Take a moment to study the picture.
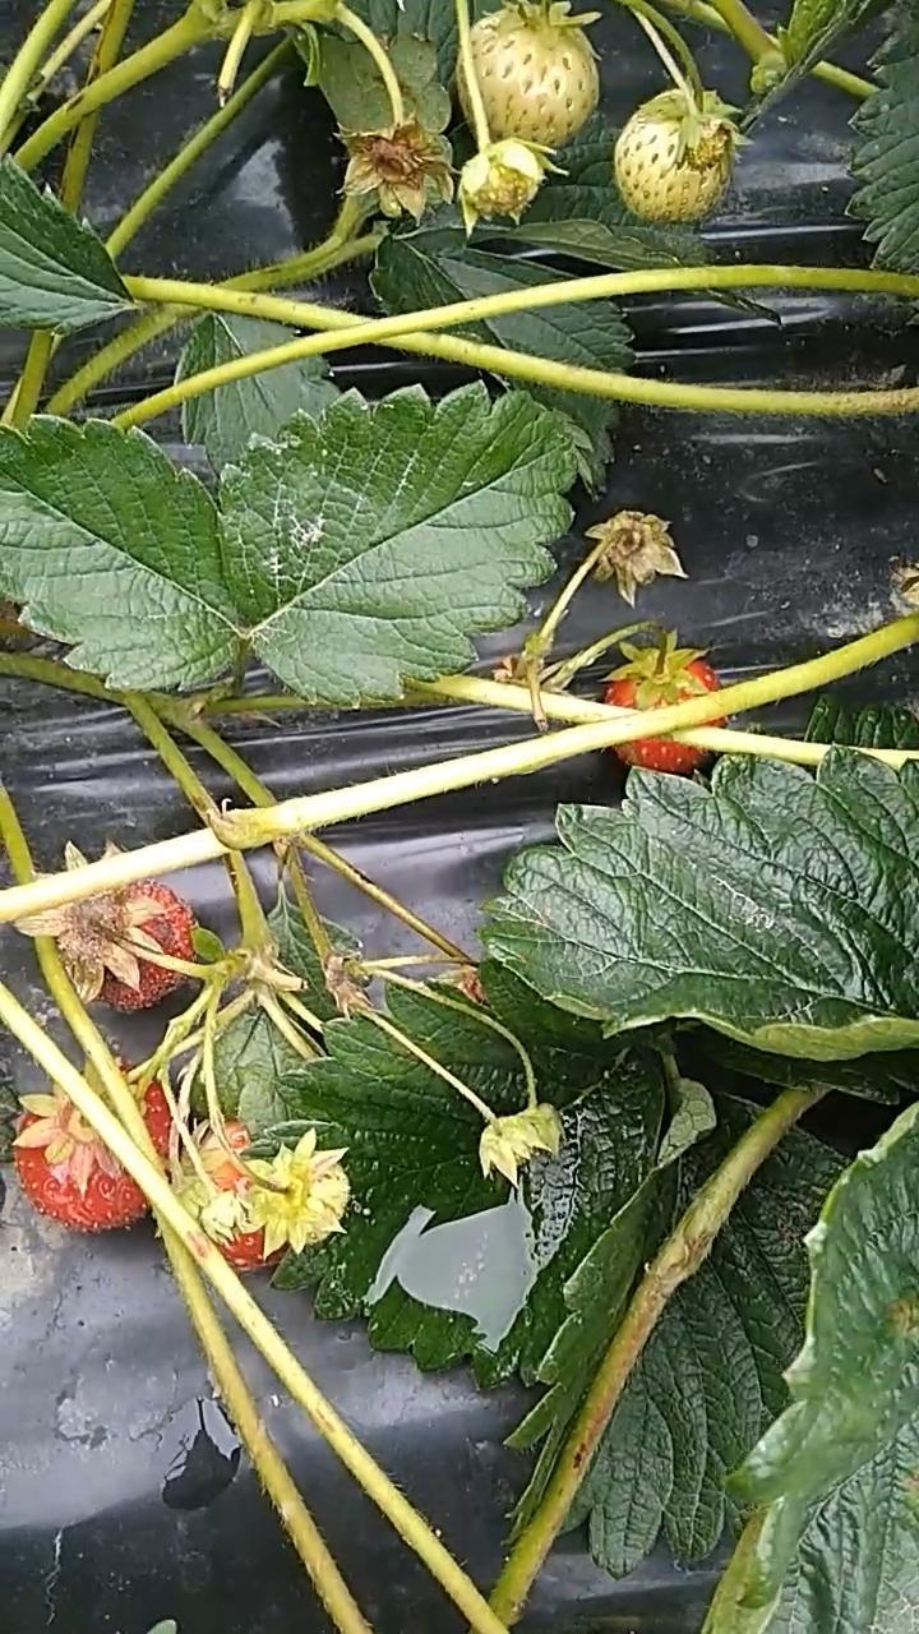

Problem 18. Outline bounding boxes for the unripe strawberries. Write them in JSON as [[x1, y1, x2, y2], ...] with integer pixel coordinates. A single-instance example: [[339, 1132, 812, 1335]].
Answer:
[[248, 1142, 348, 1247], [451, 6, 614, 158], [613, 86, 750, 236]]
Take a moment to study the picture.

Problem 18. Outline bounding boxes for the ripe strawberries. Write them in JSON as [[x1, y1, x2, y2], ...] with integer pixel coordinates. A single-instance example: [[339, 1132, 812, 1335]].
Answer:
[[66, 866, 195, 1016], [178, 1106, 316, 1278], [608, 621, 726, 783], [8, 1084, 176, 1240]]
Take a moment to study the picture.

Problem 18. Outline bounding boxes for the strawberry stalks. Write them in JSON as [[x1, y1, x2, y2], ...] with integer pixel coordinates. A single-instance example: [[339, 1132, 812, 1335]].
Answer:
[[168, 1122, 214, 1208], [551, 603, 703, 715], [56, 1016, 184, 1154], [76, 908, 238, 988], [242, 1070, 302, 1210], [652, 20, 727, 141], [454, 54, 505, 163]]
